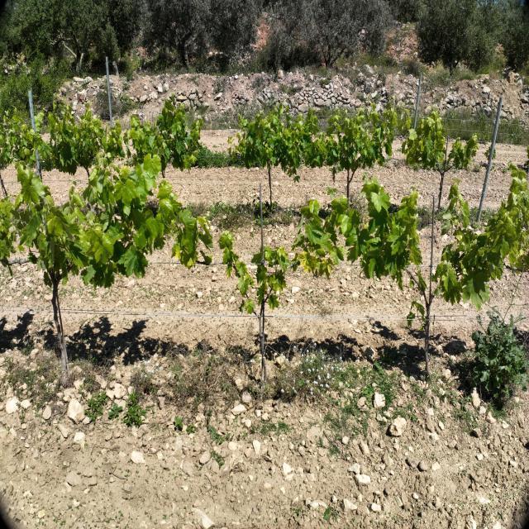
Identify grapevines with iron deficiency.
[170,188,362,400]
[359,177,529,393]
[0,148,178,399]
